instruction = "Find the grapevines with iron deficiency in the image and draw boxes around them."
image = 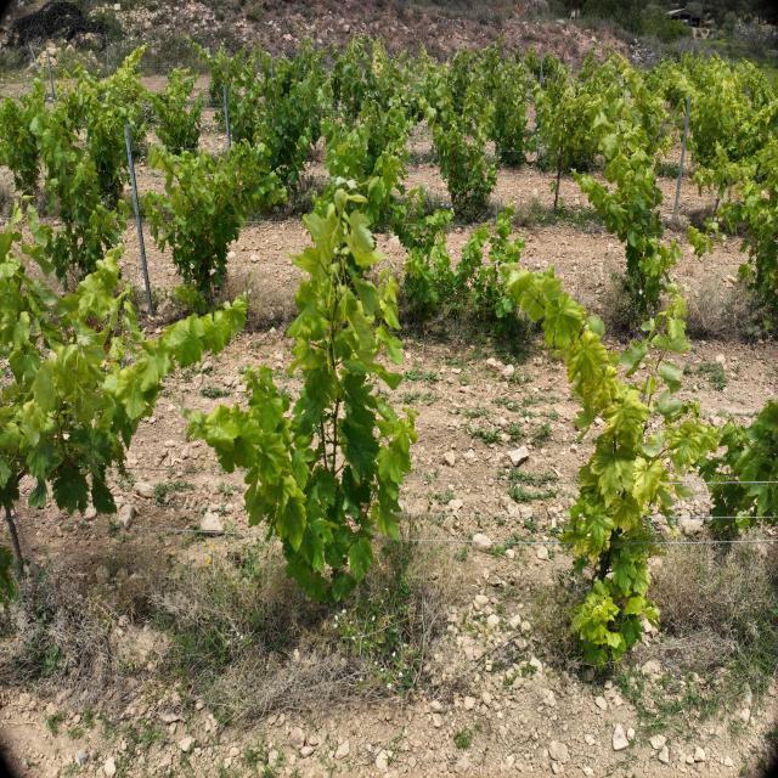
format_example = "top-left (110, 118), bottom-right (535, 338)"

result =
top-left (0, 229), bottom-right (209, 591)
top-left (531, 304), bottom-right (723, 688)
top-left (209, 198), bottom-right (432, 621)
